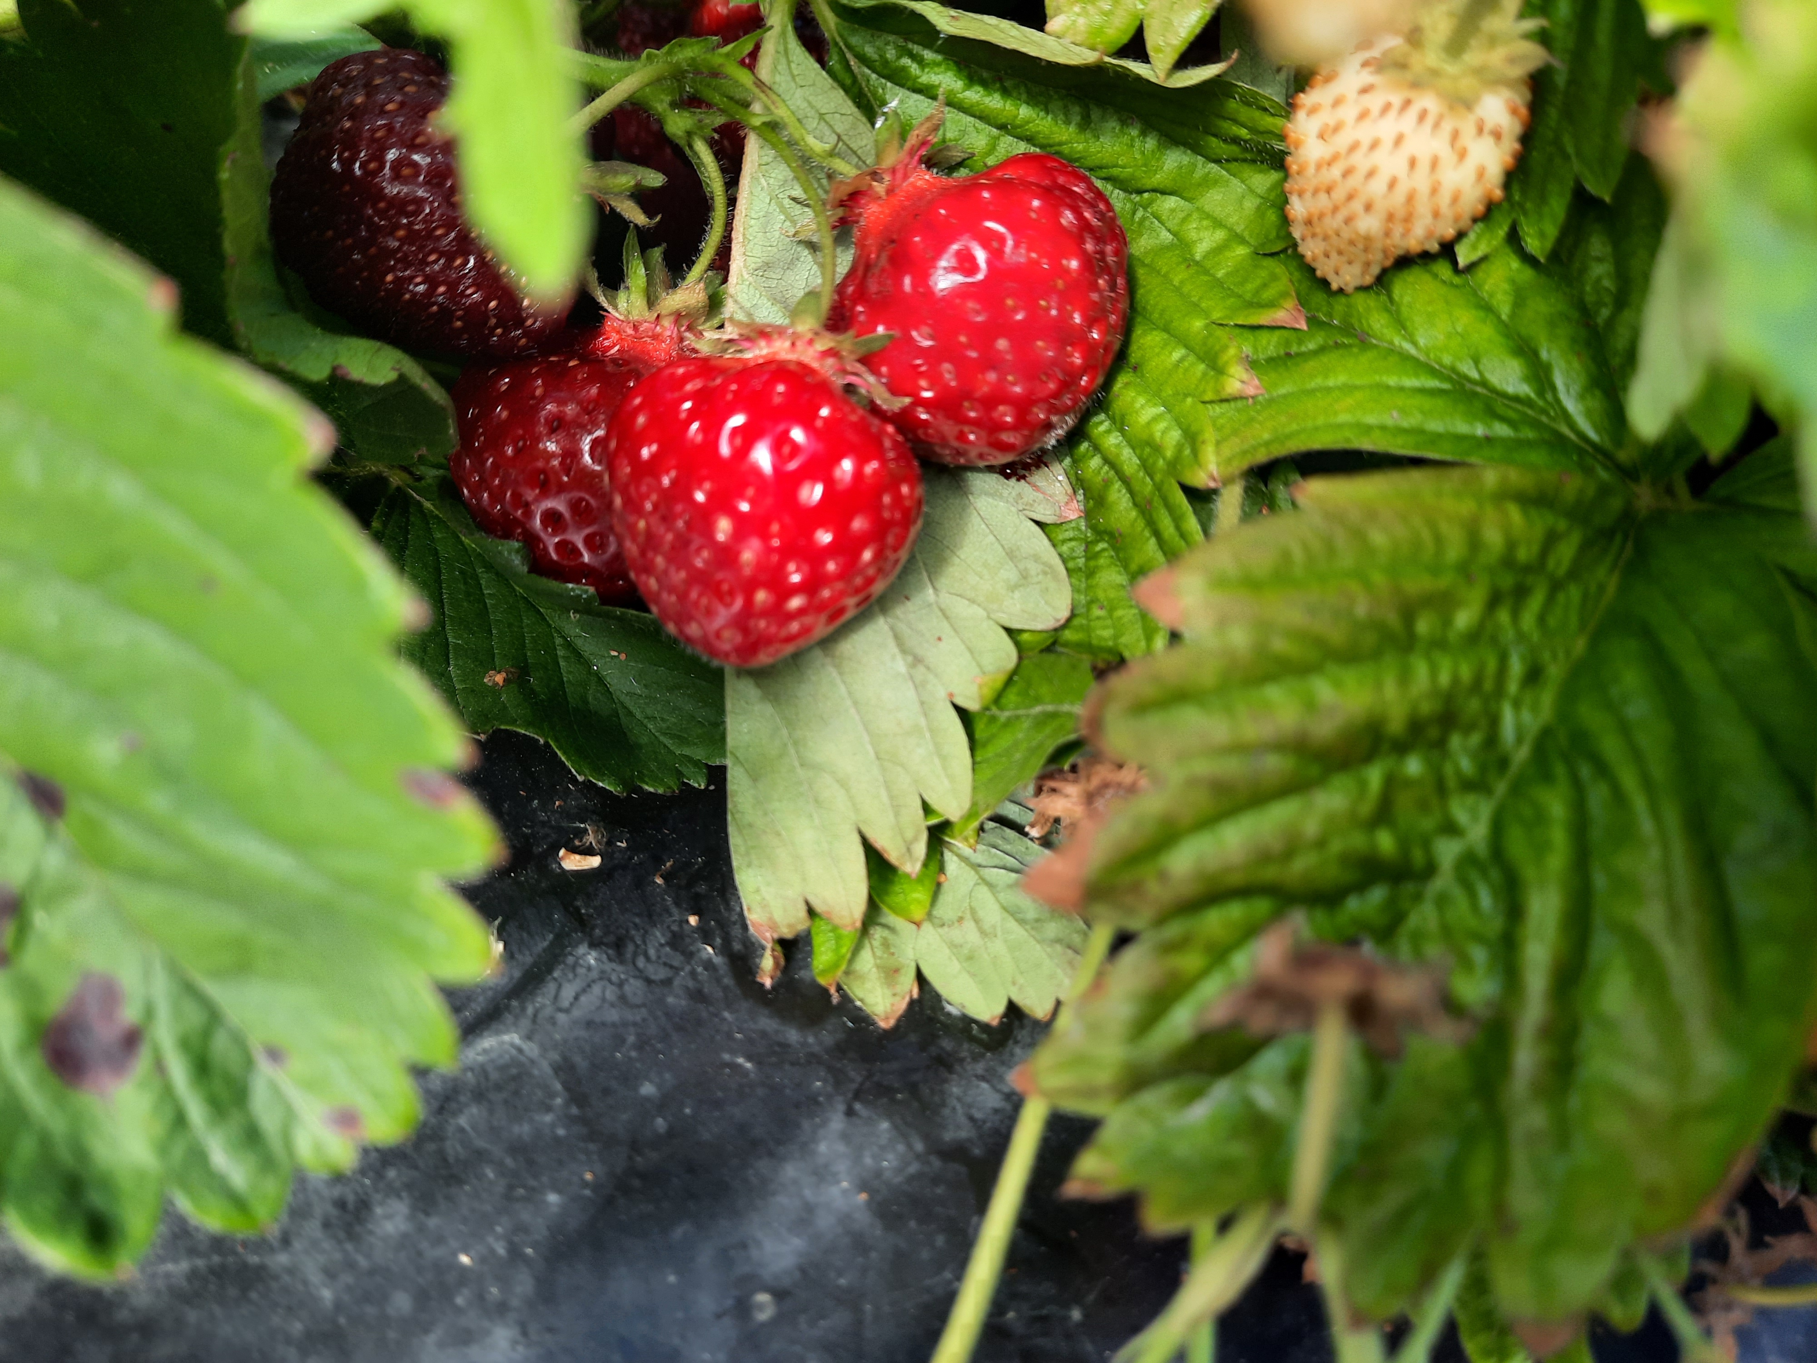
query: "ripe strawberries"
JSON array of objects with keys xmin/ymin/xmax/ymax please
[
  {"xmin": 616, "ymin": 377, "xmax": 912, "ymax": 656},
  {"xmin": 264, "ymin": 50, "xmax": 577, "ymax": 358},
  {"xmin": 850, "ymin": 166, "xmax": 1116, "ymax": 452},
  {"xmin": 456, "ymin": 377, "xmax": 696, "ymax": 579}
]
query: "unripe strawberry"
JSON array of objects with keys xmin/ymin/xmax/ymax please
[{"xmin": 1290, "ymin": 52, "xmax": 1526, "ymax": 271}]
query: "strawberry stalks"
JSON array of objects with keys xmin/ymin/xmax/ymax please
[
  {"xmin": 713, "ymin": 35, "xmax": 937, "ymax": 214},
  {"xmin": 579, "ymin": 111, "xmax": 721, "ymax": 410},
  {"xmin": 771, "ymin": 126, "xmax": 830, "ymax": 410}
]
